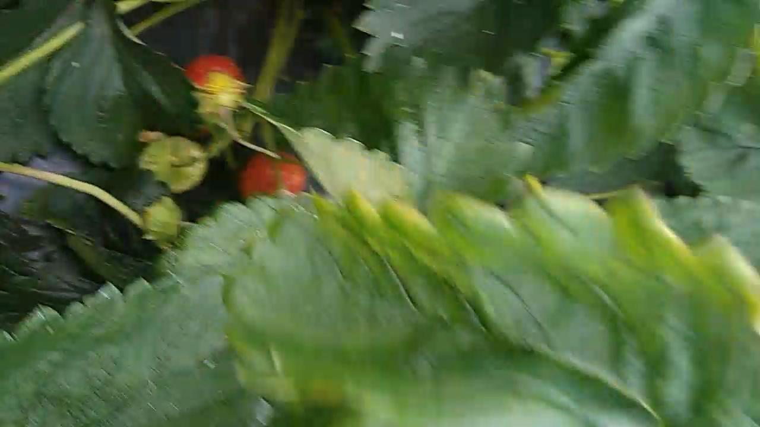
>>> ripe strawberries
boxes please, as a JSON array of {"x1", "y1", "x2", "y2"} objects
[
  {"x1": 238, "y1": 149, "x2": 310, "y2": 200},
  {"x1": 180, "y1": 53, "x2": 247, "y2": 103}
]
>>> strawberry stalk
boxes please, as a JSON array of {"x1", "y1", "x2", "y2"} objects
[{"x1": 161, "y1": 150, "x2": 213, "y2": 175}]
